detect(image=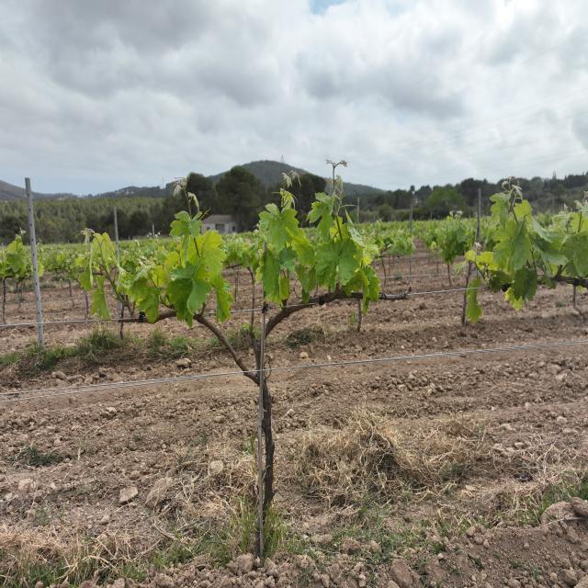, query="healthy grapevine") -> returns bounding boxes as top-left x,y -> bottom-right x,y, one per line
78,212 -> 390,569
